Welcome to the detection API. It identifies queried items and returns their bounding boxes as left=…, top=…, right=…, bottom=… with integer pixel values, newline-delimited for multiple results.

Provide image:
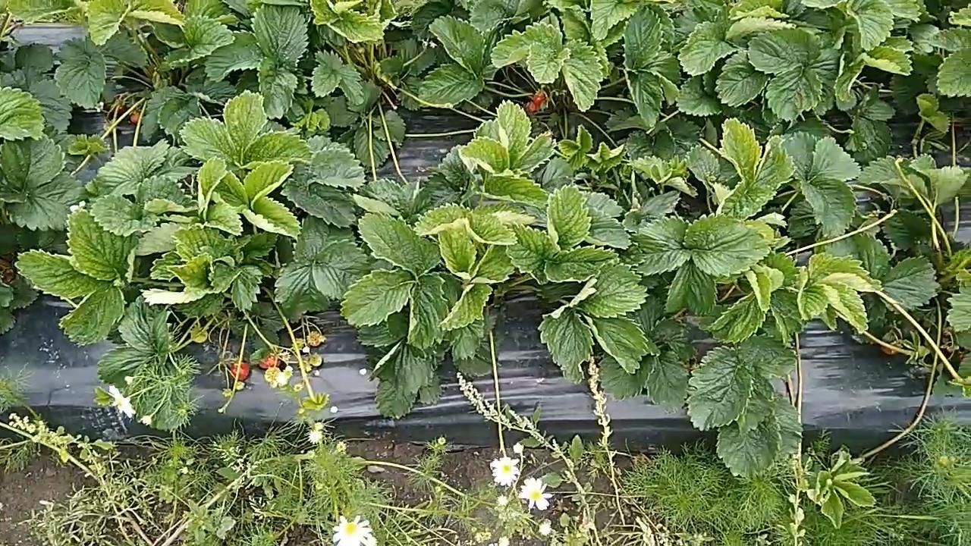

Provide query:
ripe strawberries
left=528, top=88, right=549, bottom=111
left=227, top=354, right=259, bottom=387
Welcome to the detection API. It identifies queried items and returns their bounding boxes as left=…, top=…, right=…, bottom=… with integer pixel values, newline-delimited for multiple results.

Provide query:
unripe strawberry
left=259, top=348, right=283, bottom=371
